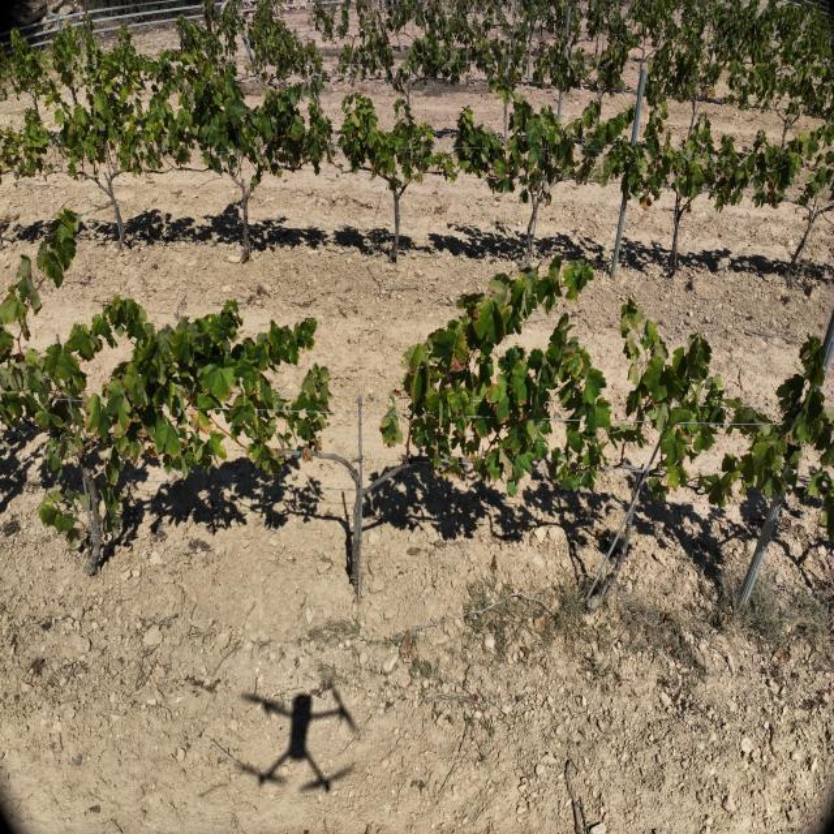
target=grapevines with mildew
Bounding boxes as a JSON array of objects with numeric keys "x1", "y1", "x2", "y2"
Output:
[
  {"x1": 0, "y1": 210, "x2": 199, "y2": 594},
  {"x1": 511, "y1": 334, "x2": 818, "y2": 630},
  {"x1": 176, "y1": 261, "x2": 560, "y2": 611}
]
